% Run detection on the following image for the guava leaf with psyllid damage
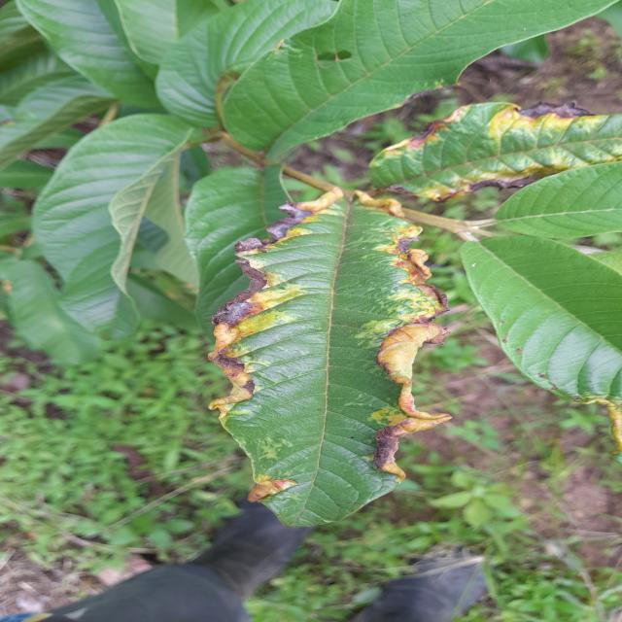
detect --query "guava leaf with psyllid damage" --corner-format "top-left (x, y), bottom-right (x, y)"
top-left (205, 184), bottom-right (466, 546)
